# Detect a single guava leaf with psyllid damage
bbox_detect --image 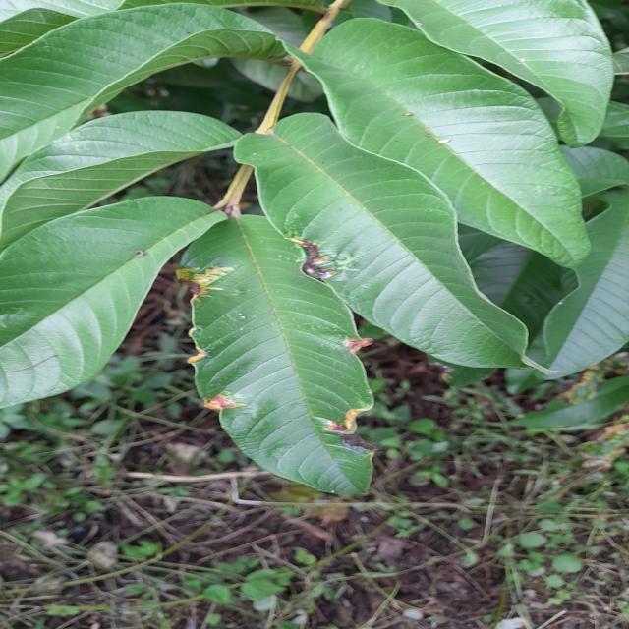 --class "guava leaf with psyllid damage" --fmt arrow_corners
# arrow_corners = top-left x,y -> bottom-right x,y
166,214 -> 409,522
